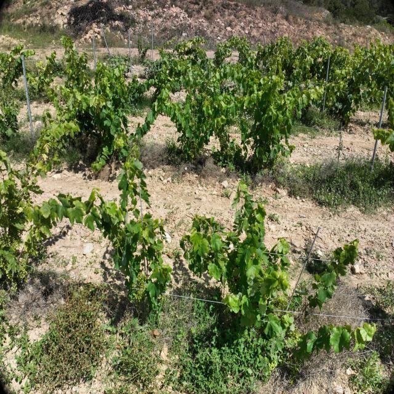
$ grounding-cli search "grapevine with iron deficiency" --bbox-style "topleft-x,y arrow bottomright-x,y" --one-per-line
0,114 -> 84,299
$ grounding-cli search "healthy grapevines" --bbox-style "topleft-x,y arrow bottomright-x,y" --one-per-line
85,153 -> 179,318
177,203 -> 374,370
